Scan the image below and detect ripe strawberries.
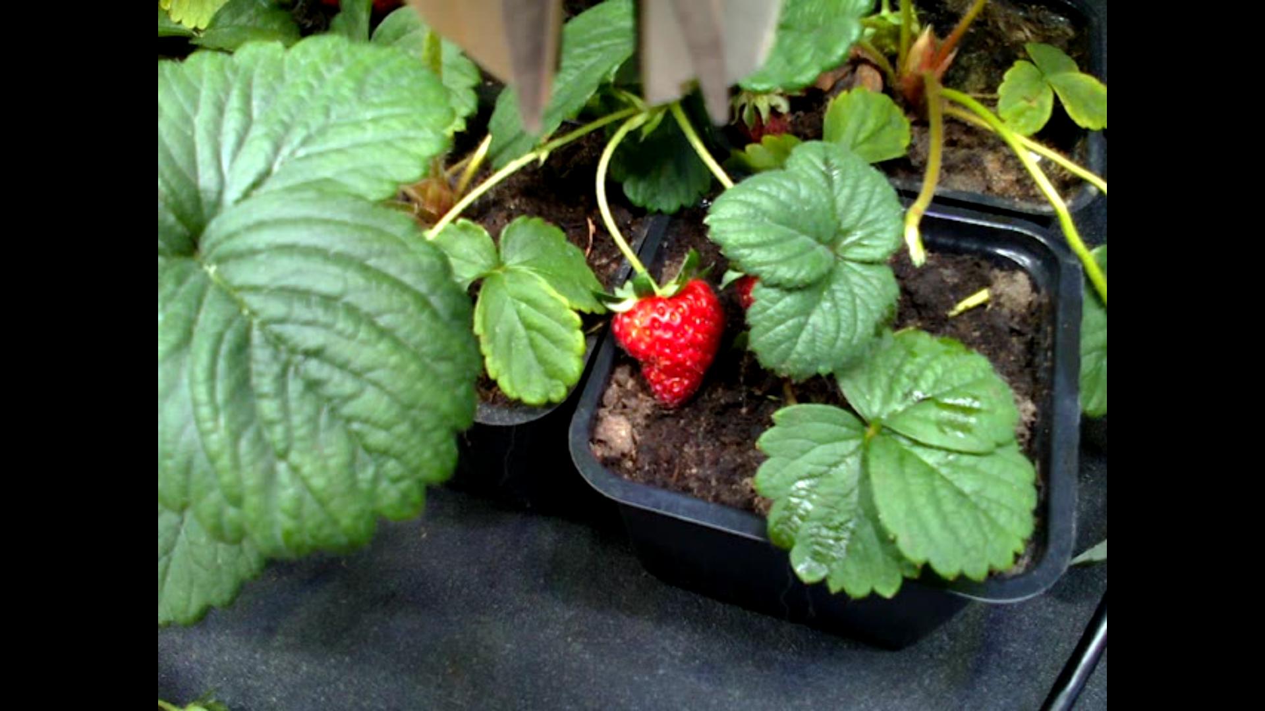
[725,233,825,319]
[586,282,741,411]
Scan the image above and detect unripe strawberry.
[577,135,594,137]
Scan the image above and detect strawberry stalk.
[583,161,651,300]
